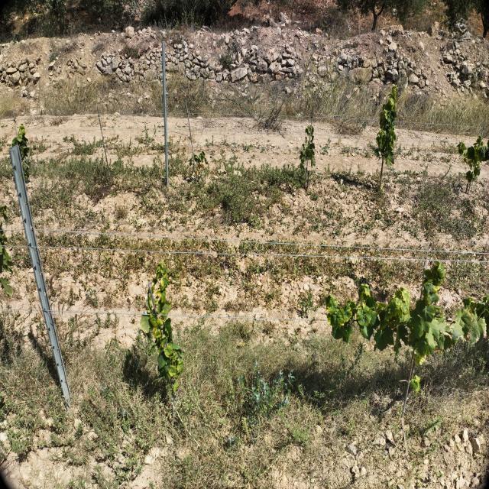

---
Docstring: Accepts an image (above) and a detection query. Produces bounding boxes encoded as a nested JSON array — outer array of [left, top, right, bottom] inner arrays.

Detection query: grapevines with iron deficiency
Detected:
[[318, 251, 489, 432], [131, 257, 202, 413]]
